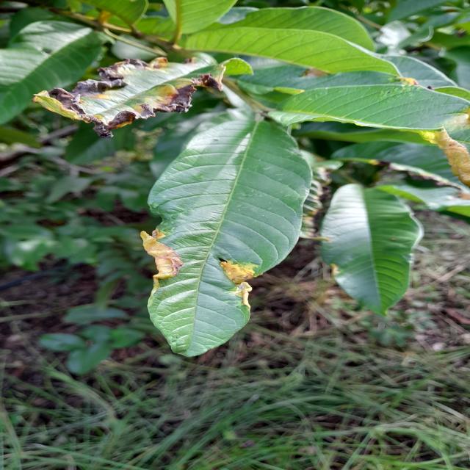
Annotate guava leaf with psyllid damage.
[139,115,326,366]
